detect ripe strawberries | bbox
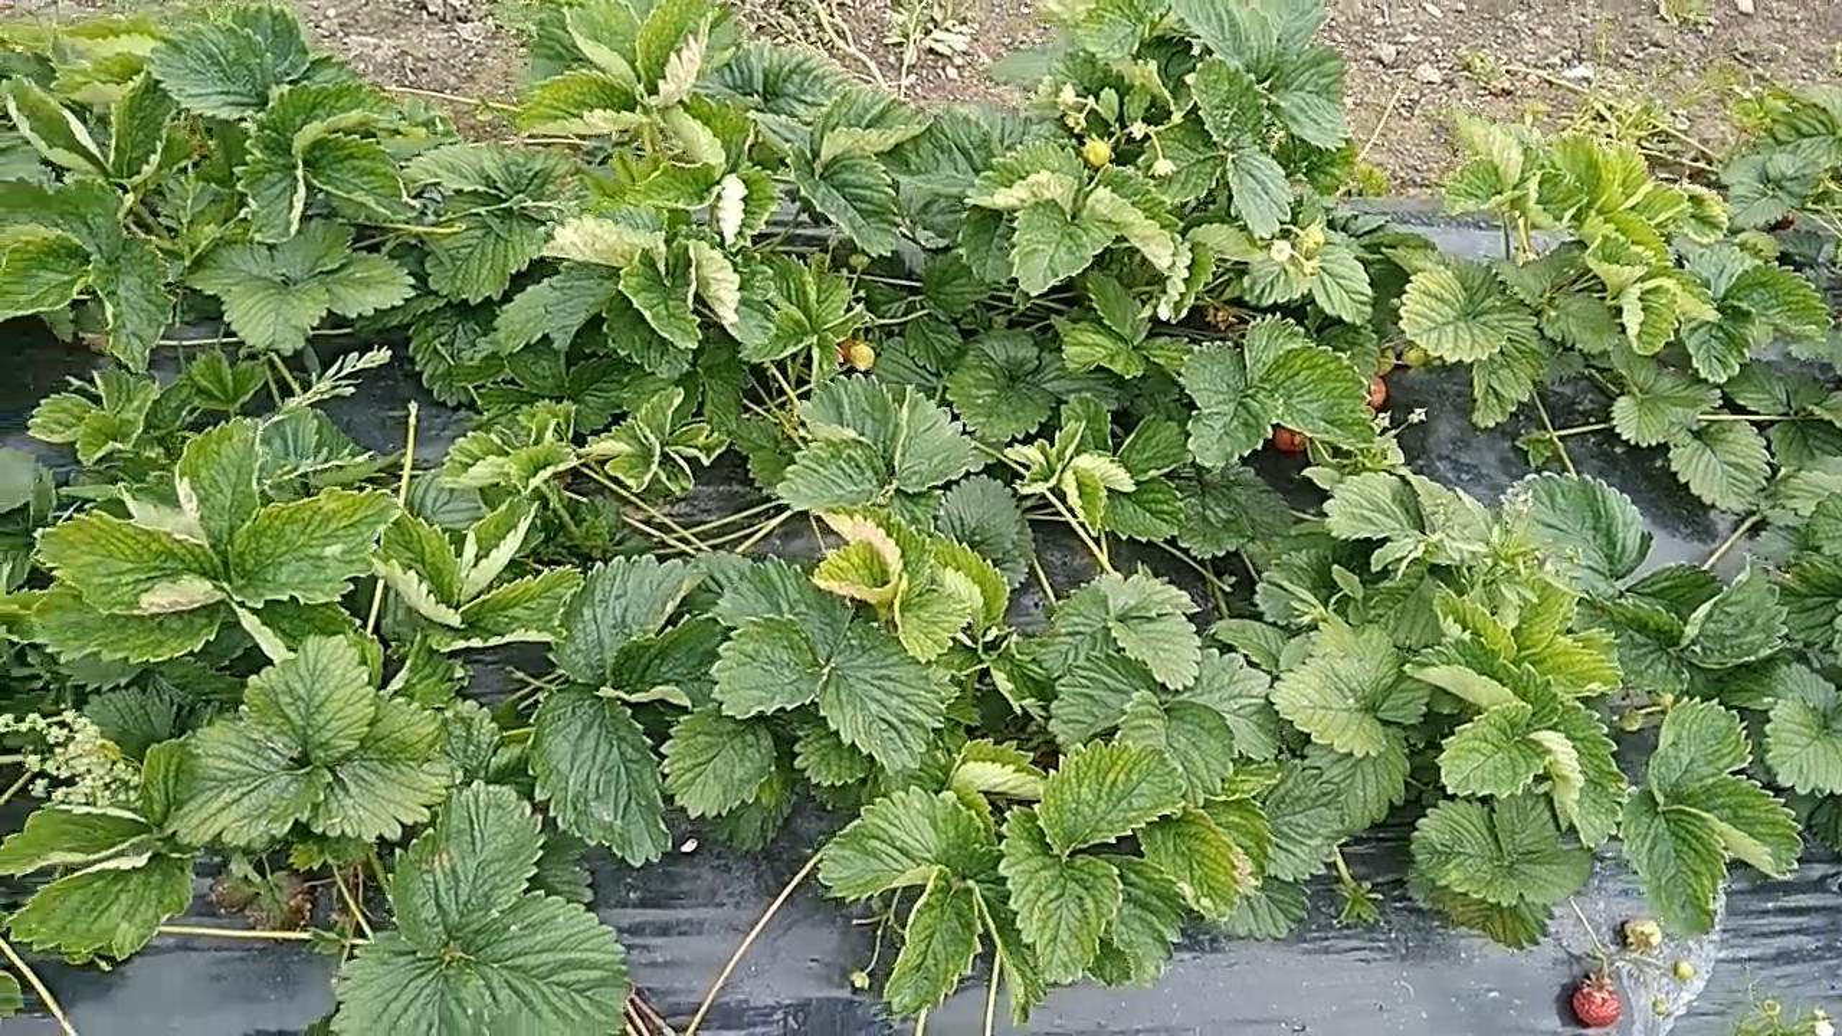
[1367,378,1387,405]
[1267,401,1319,455]
[1571,978,1623,1027]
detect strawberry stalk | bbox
[1592,940,1616,1000]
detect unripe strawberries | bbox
[1404,345,1425,367]
[849,343,876,373]
[1083,135,1112,168]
